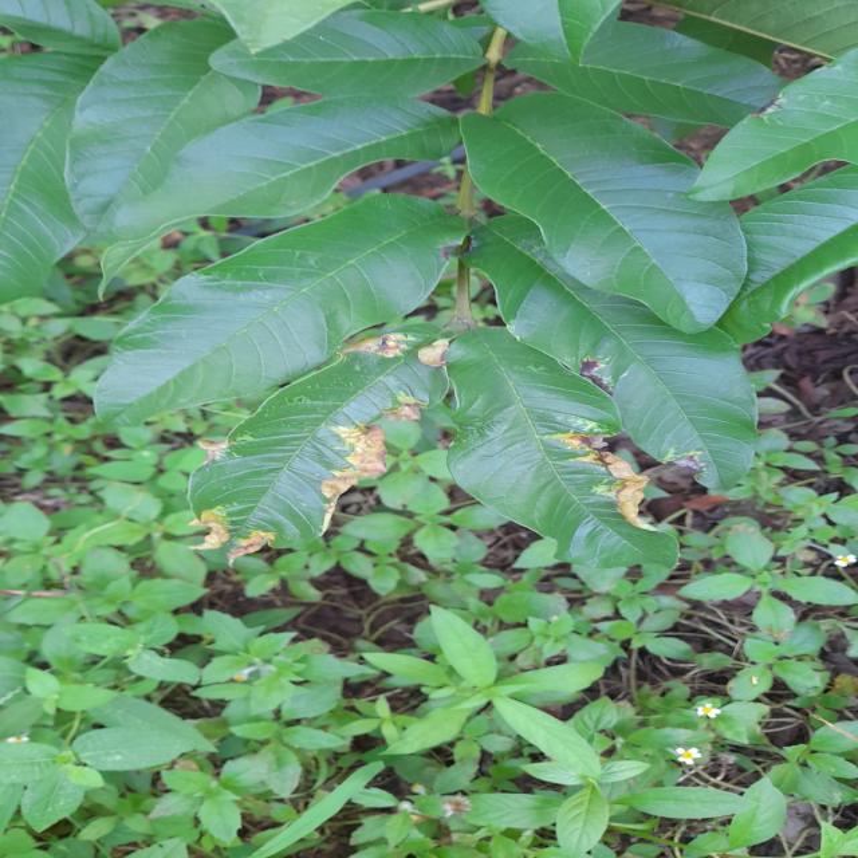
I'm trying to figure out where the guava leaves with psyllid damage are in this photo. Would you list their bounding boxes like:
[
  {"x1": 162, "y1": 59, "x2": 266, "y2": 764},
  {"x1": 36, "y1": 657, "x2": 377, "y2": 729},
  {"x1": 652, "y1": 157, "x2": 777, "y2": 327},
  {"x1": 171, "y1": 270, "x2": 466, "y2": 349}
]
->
[
  {"x1": 432, "y1": 307, "x2": 756, "y2": 607},
  {"x1": 165, "y1": 296, "x2": 491, "y2": 577}
]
